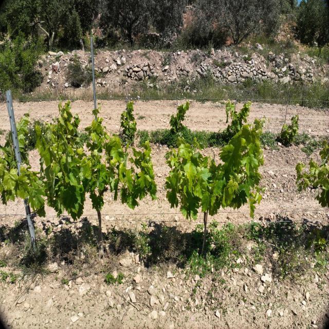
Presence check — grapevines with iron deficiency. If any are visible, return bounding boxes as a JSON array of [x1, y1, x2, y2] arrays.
[[0, 103, 158, 257], [161, 129, 268, 263]]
